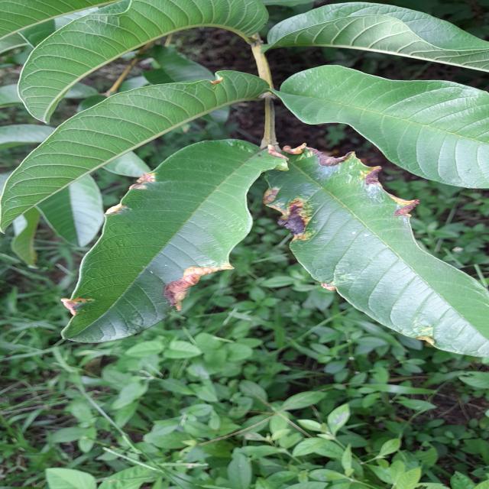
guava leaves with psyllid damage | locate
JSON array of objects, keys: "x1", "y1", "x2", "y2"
[
  {"x1": 267, "y1": 140, "x2": 489, "y2": 364},
  {"x1": 41, "y1": 142, "x2": 289, "y2": 368}
]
